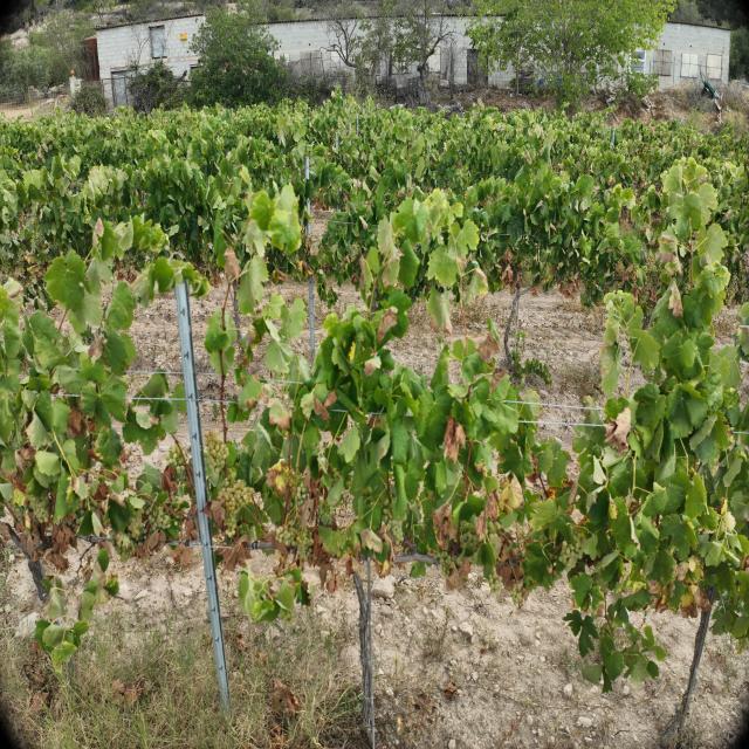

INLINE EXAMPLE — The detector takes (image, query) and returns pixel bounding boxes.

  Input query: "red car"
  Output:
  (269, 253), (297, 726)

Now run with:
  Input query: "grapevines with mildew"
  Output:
(565, 294), (749, 749)
(177, 307), (562, 749)
(0, 272), (171, 703)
